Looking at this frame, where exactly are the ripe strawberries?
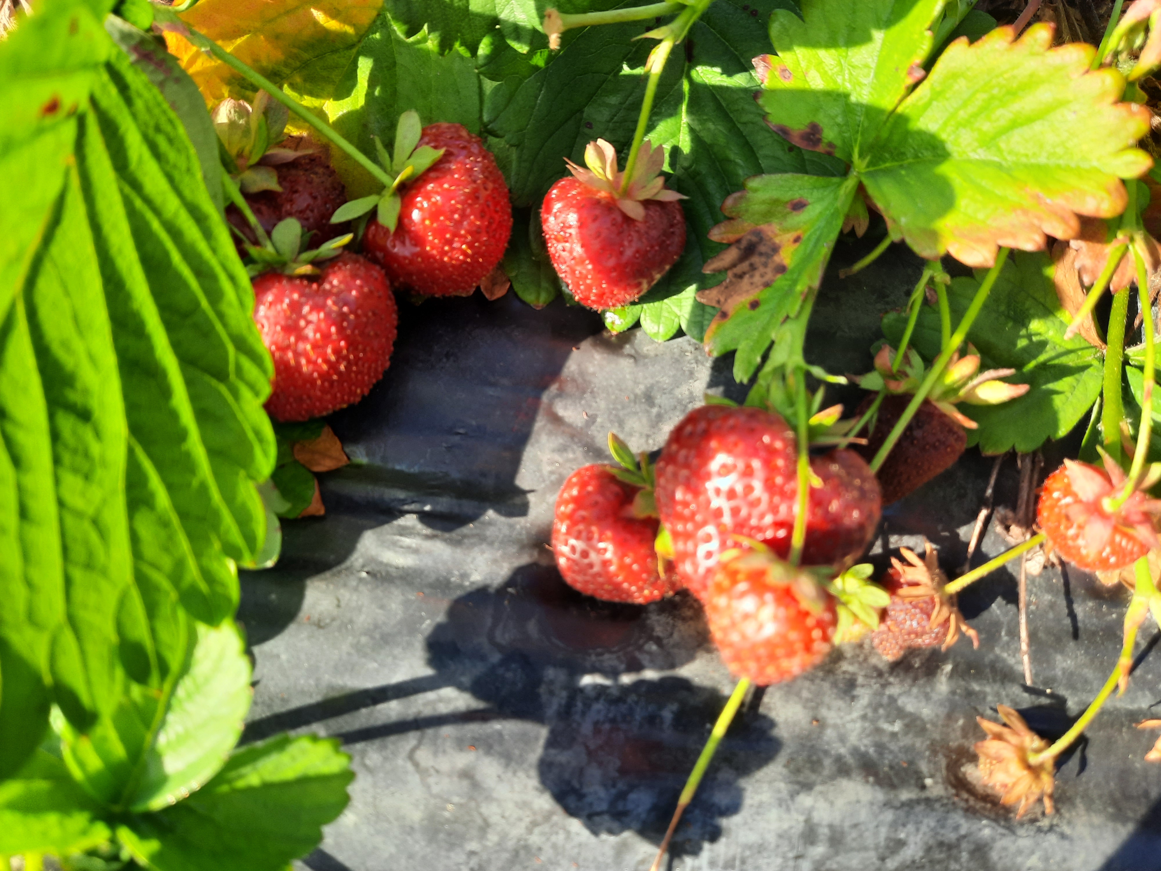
[383,131,507,273]
[541,175,687,321]
[705,553,836,678]
[1050,464,1156,575]
[675,403,863,577]
[547,460,666,607]
[248,254,390,430]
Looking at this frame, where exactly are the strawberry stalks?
[1085,309,1161,526]
[753,396,814,616]
[592,50,676,220]
[255,72,433,195]
[220,169,311,296]
[846,317,976,496]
